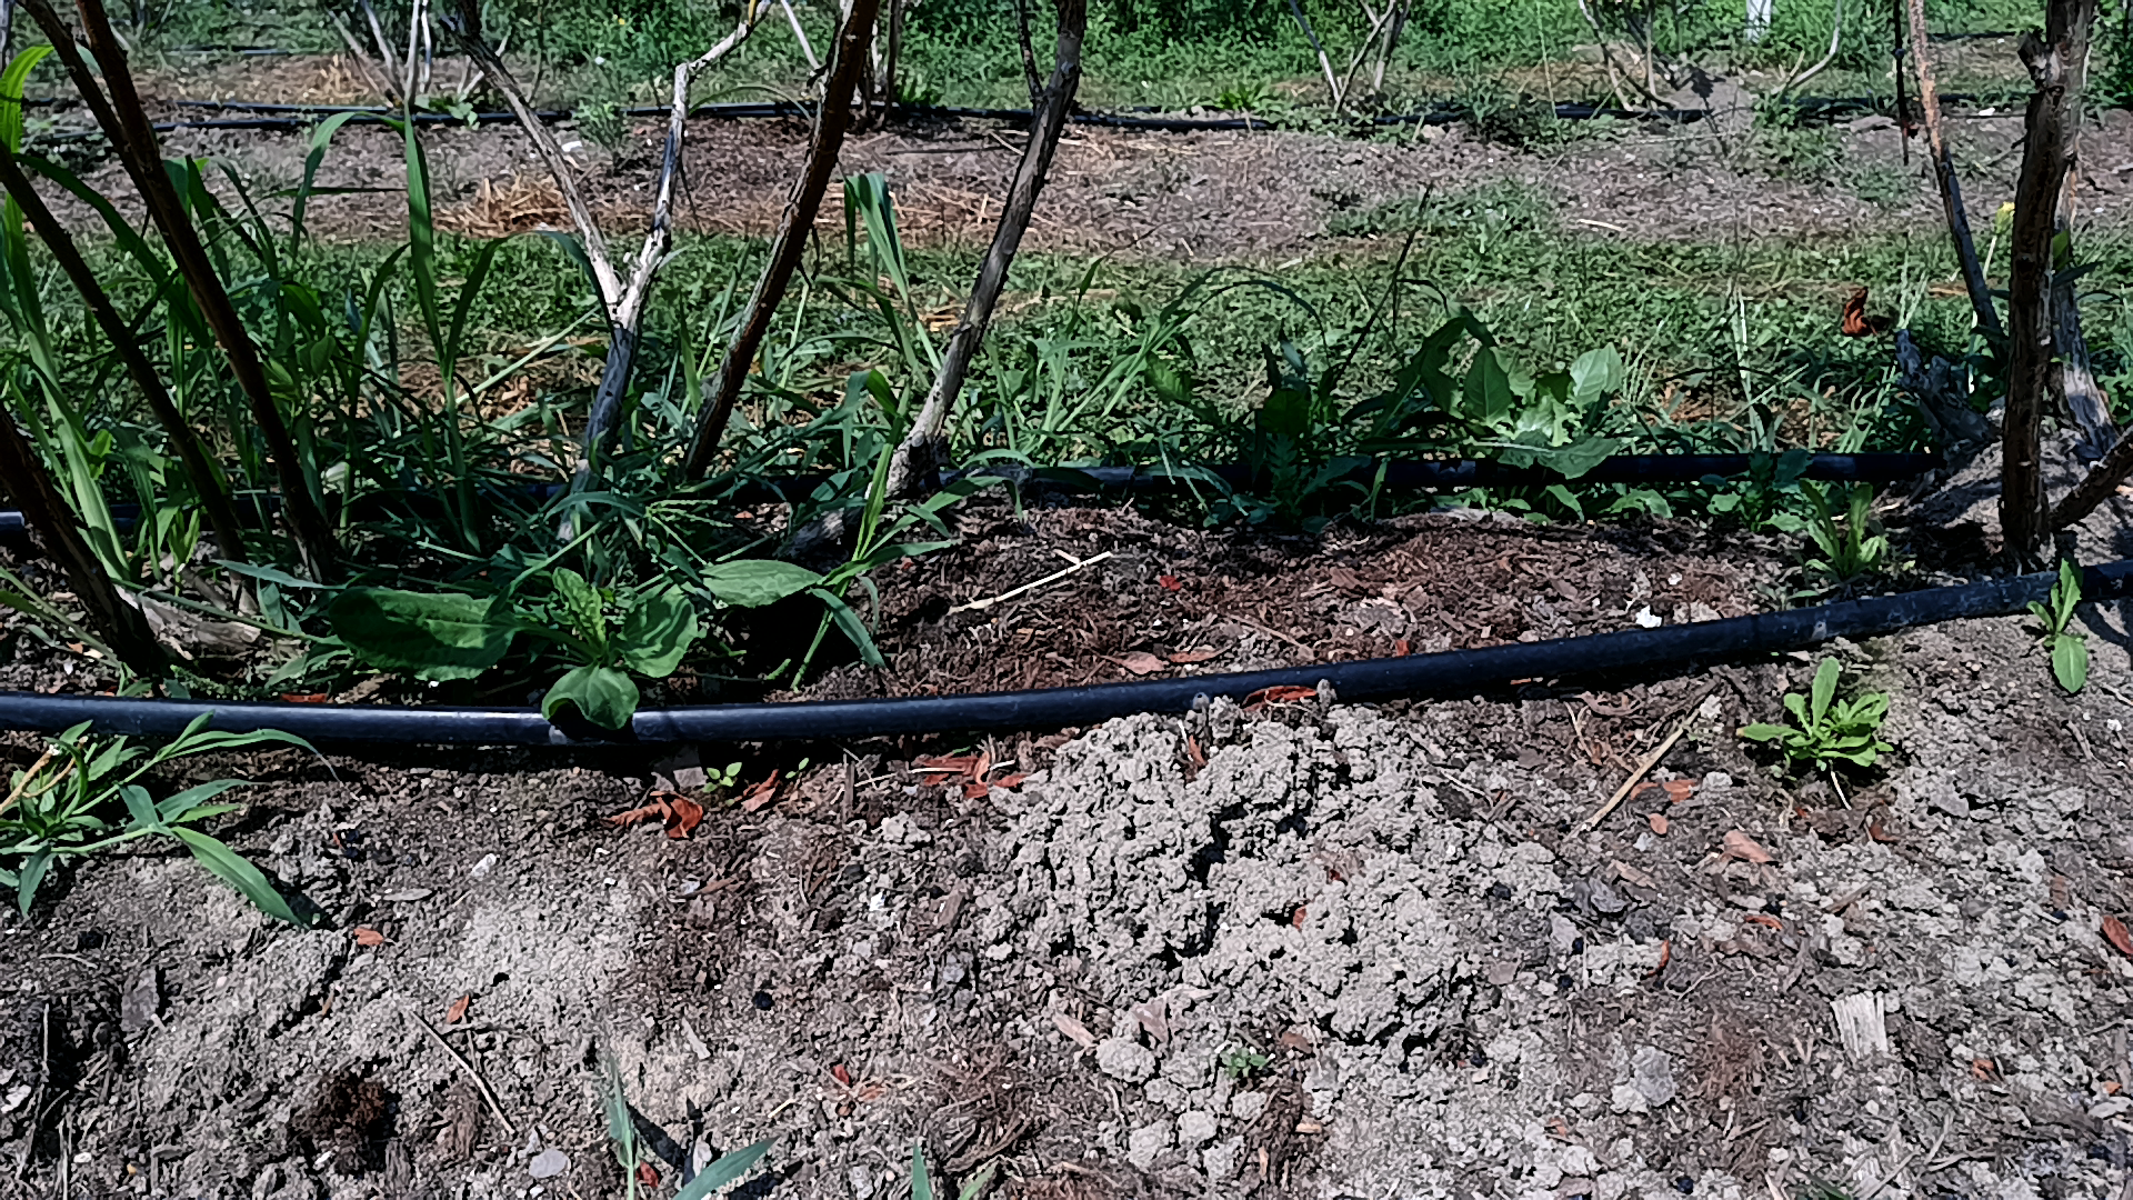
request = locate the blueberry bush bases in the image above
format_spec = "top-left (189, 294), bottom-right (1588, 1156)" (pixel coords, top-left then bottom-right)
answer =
top-left (1889, 203), bottom-right (2117, 643)
top-left (0, 229), bottom-right (1051, 773)
top-left (351, 57), bottom-right (460, 139)
top-left (1576, 29), bottom-right (1827, 129)
top-left (777, 36), bottom-right (943, 145)
top-left (1292, 48), bottom-right (1431, 148)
